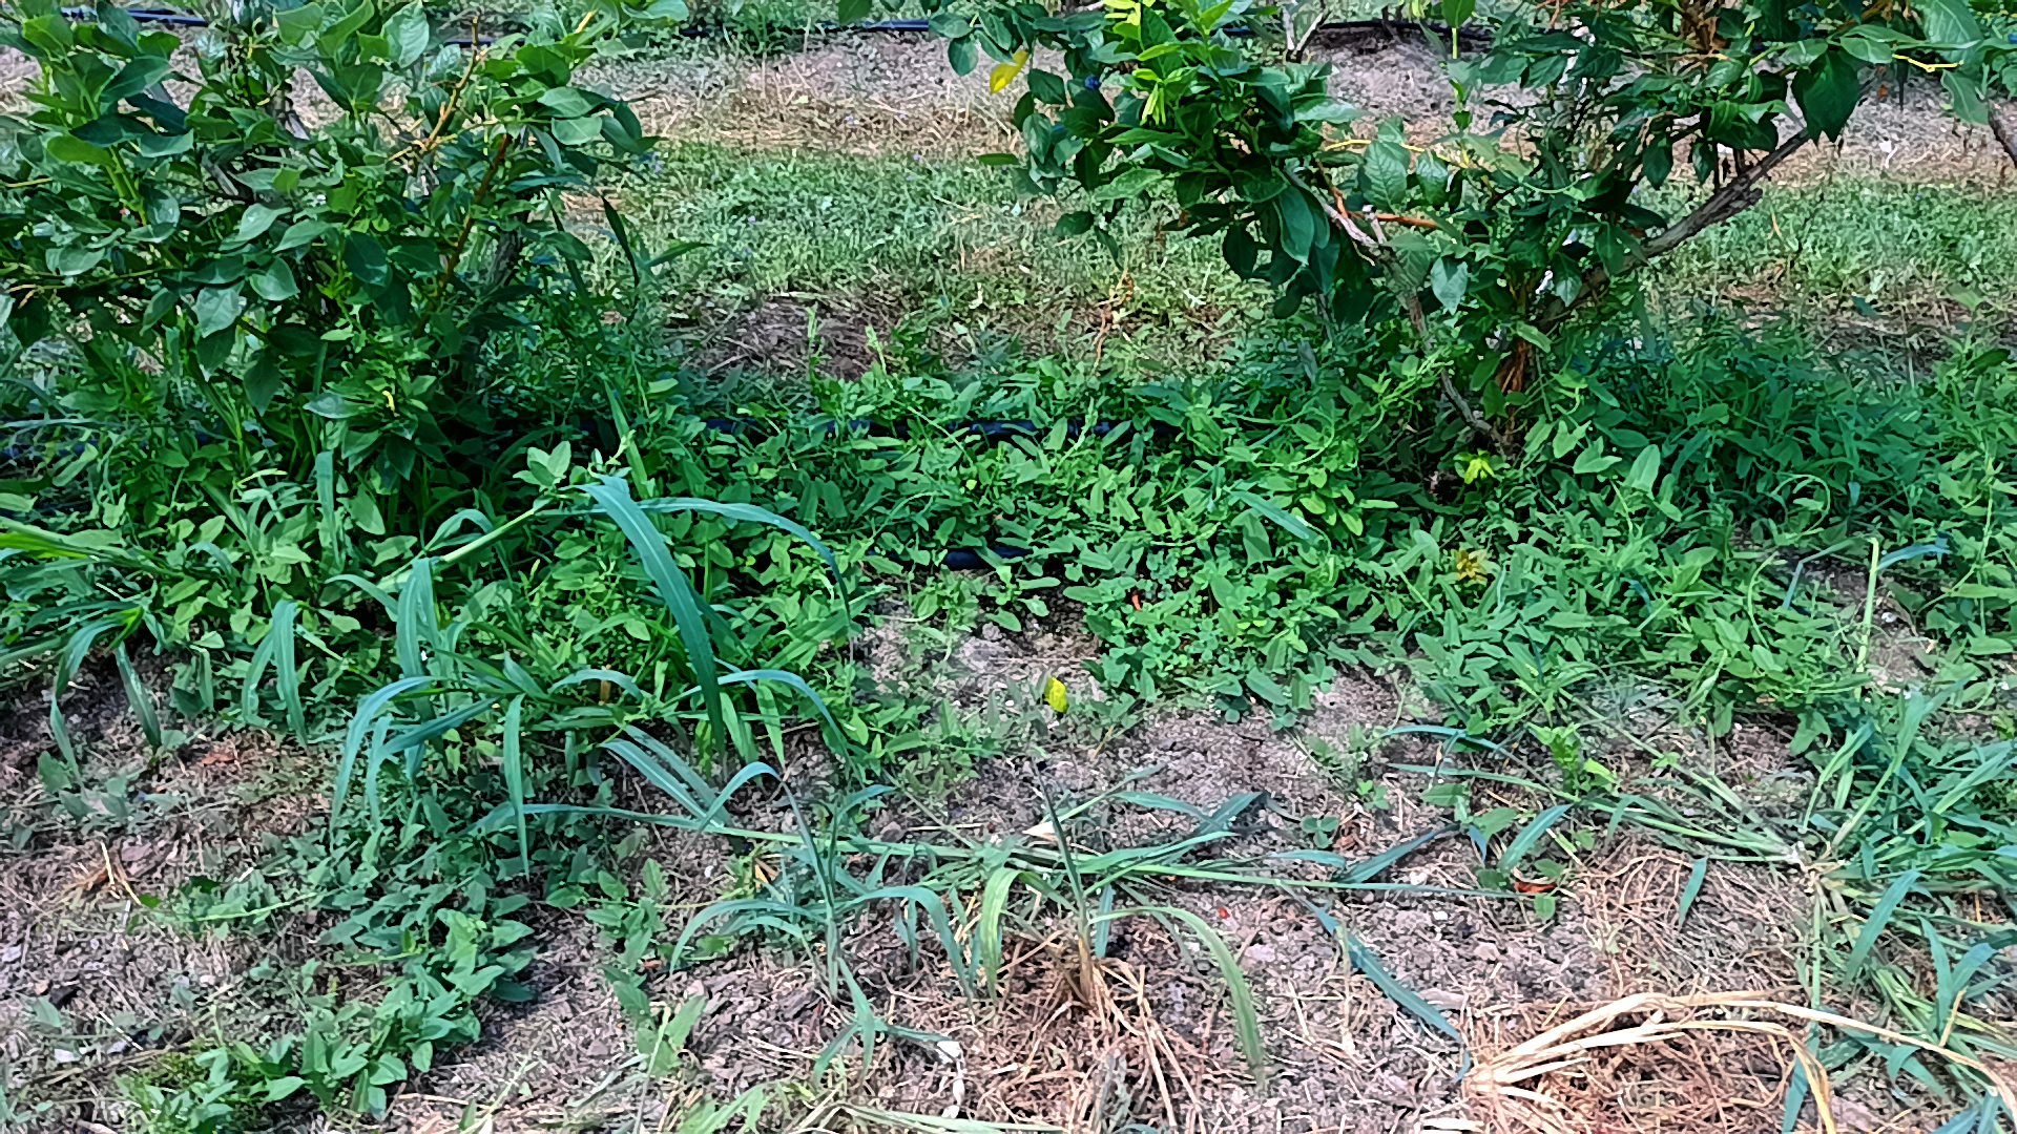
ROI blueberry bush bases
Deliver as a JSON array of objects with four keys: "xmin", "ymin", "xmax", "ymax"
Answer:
[
  {"xmin": 28, "ymin": 53, "xmax": 601, "ymax": 598},
  {"xmin": 1257, "ymin": 210, "xmax": 1707, "ymax": 575}
]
